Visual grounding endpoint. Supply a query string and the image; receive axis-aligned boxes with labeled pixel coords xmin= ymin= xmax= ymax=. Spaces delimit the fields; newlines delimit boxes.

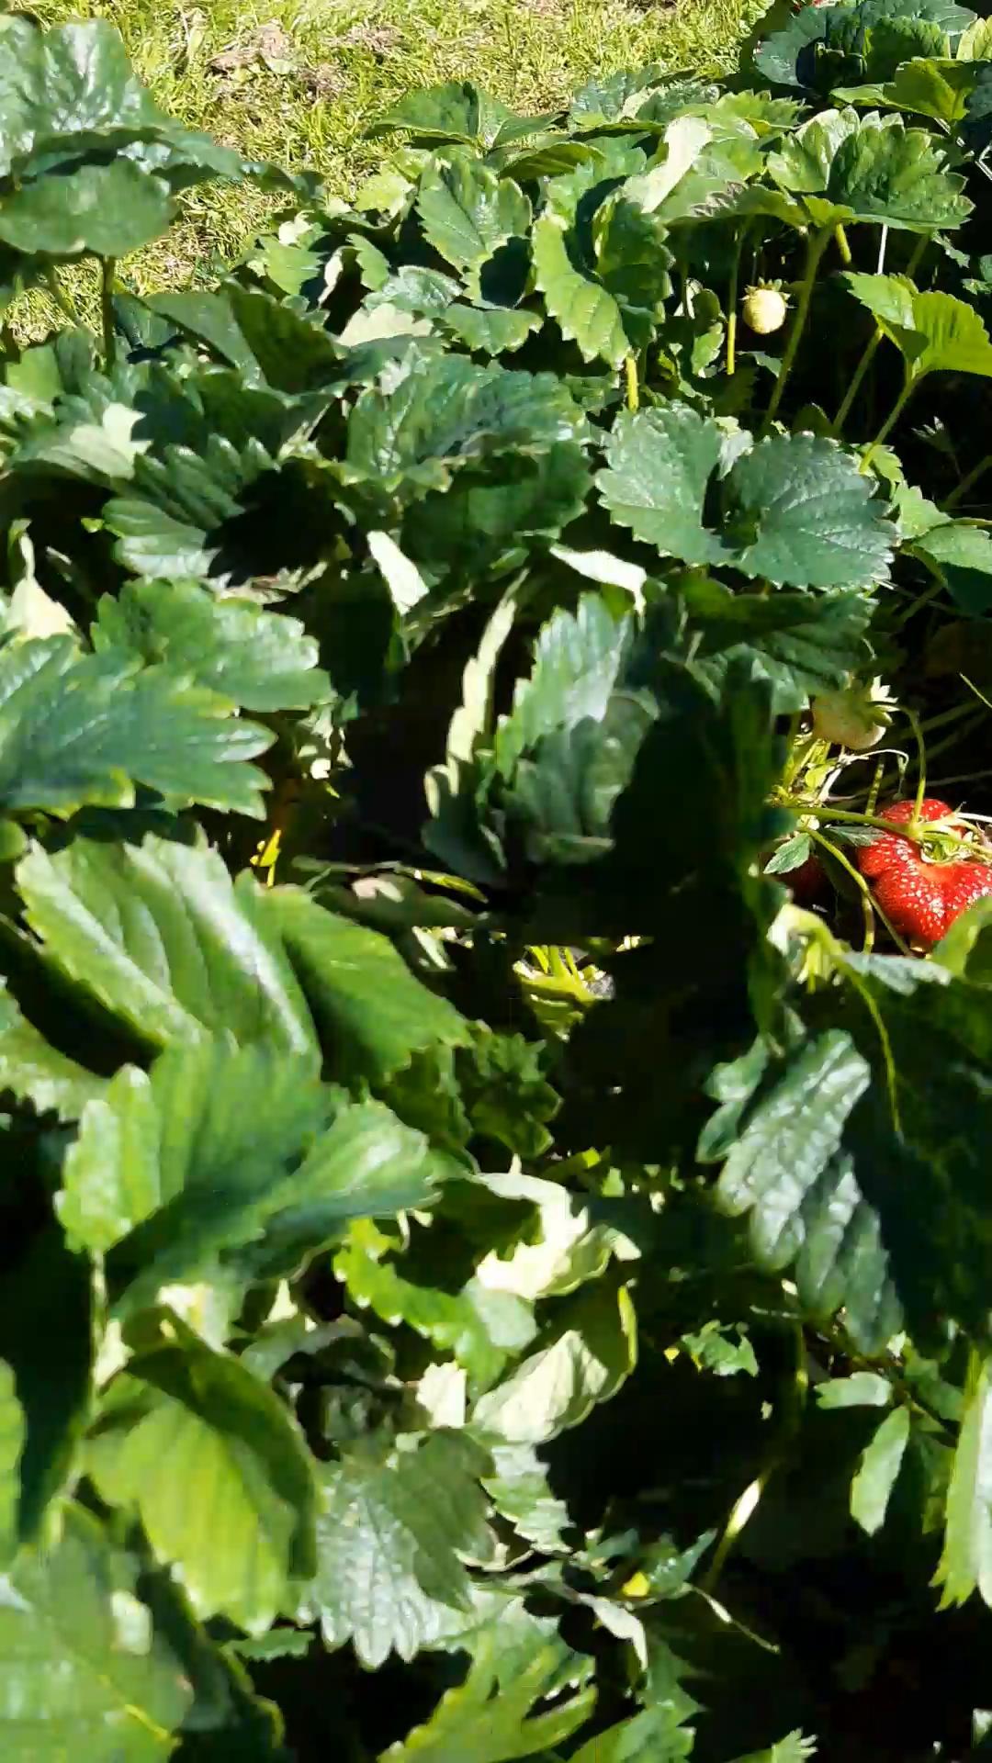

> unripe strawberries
xmin=804 ymin=678 xmax=902 ymax=758
xmin=734 ymin=275 xmax=803 ymax=338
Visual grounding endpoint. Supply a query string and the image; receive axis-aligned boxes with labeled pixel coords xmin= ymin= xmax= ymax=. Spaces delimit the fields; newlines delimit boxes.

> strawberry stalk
xmin=857 ymin=790 xmax=957 ymax=863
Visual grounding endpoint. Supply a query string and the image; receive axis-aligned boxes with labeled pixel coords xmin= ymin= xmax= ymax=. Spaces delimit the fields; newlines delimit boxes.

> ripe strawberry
xmin=870 ymin=793 xmax=992 ymax=946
